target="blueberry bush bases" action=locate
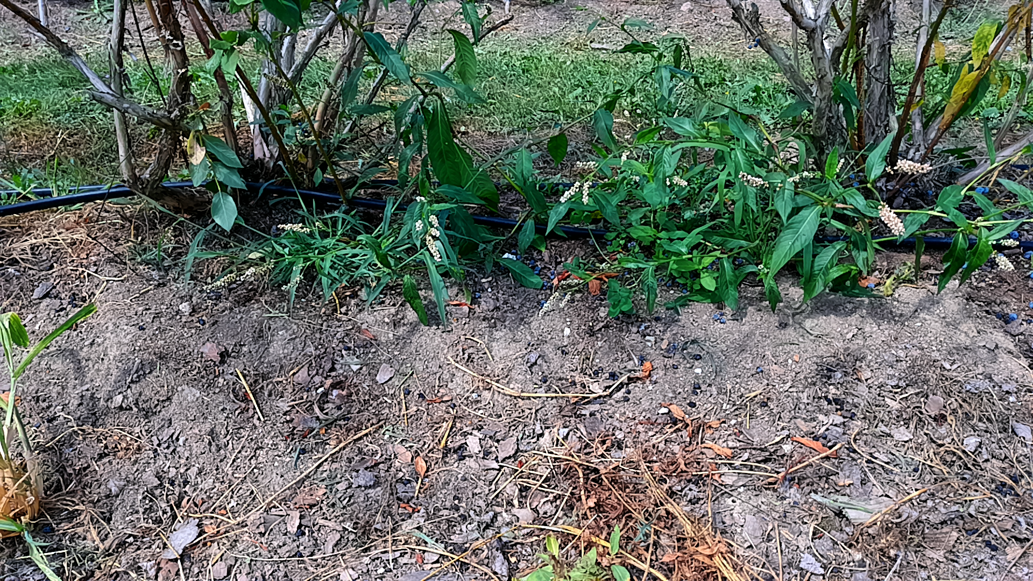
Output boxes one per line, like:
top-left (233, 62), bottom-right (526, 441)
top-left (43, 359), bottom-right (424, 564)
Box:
top-left (754, 41), bottom-right (1014, 281)
top-left (117, 59), bottom-right (384, 282)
